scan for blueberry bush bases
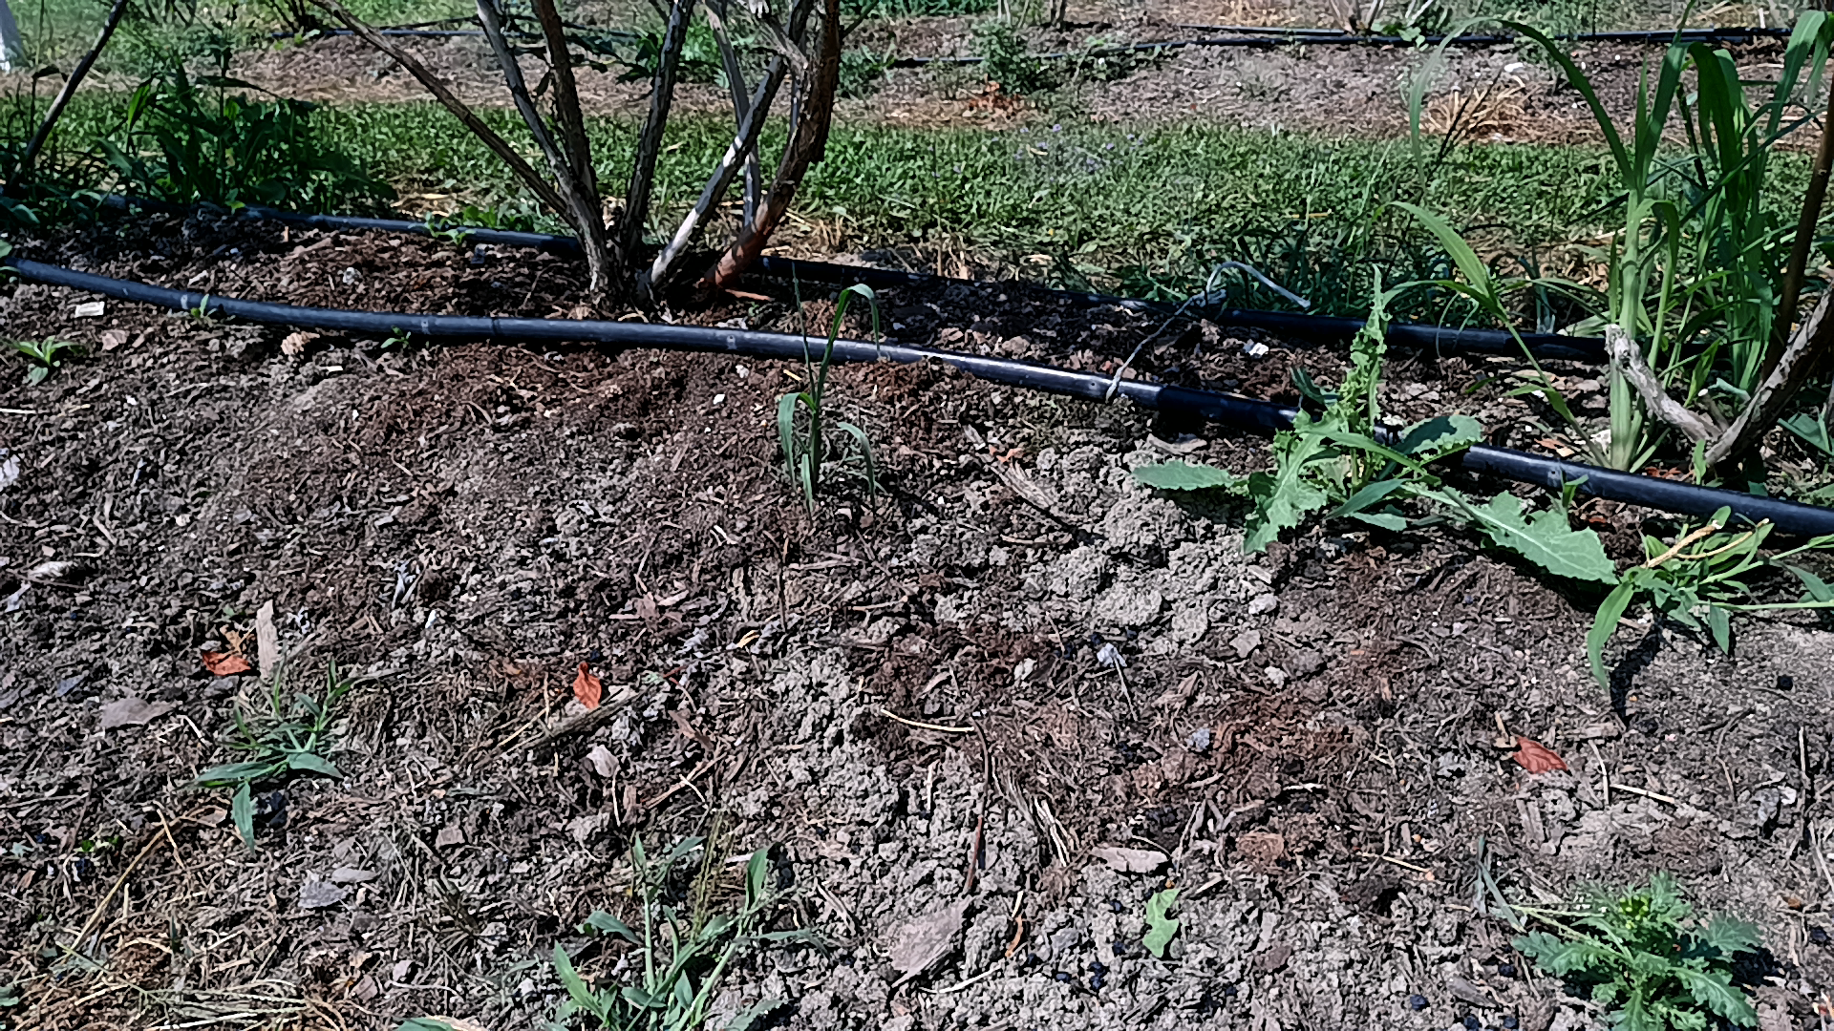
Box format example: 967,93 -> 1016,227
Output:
489,131 -> 842,368
1314,0 -> 1486,65
2,75 -> 96,261
1608,224 -> 1833,580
